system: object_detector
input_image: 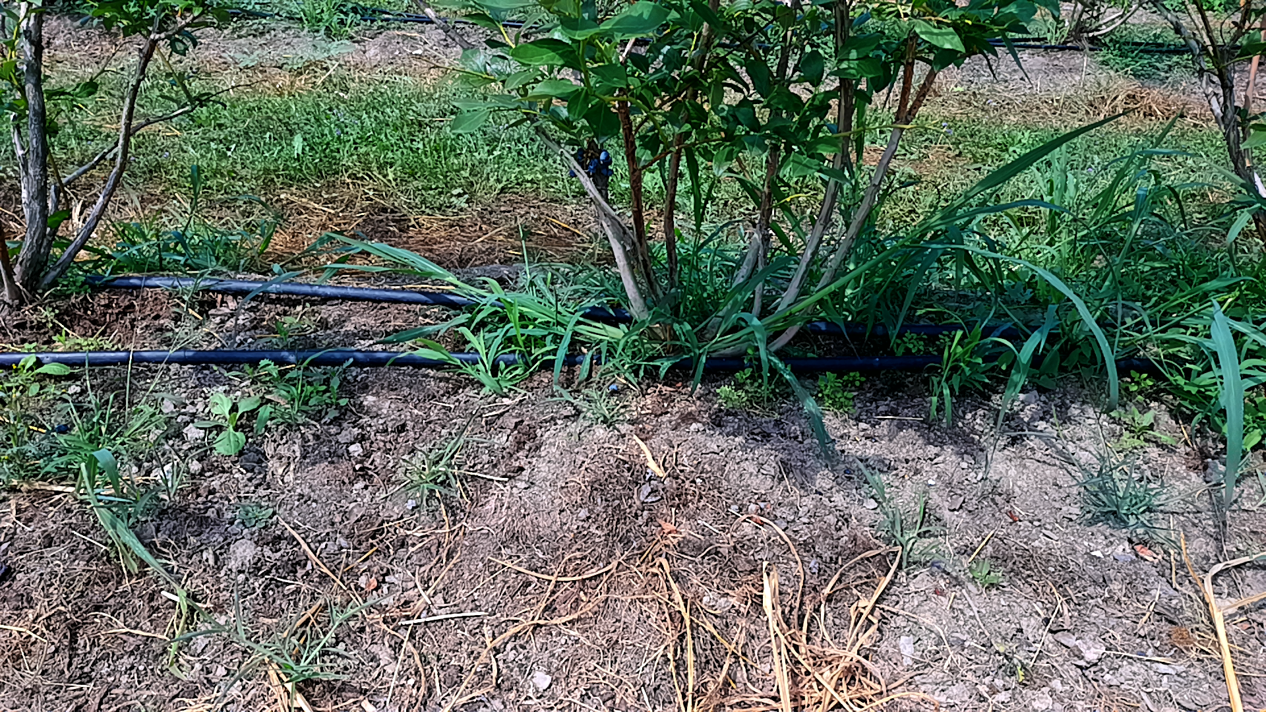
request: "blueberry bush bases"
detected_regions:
[565,200,906,400]
[0,155,153,365]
